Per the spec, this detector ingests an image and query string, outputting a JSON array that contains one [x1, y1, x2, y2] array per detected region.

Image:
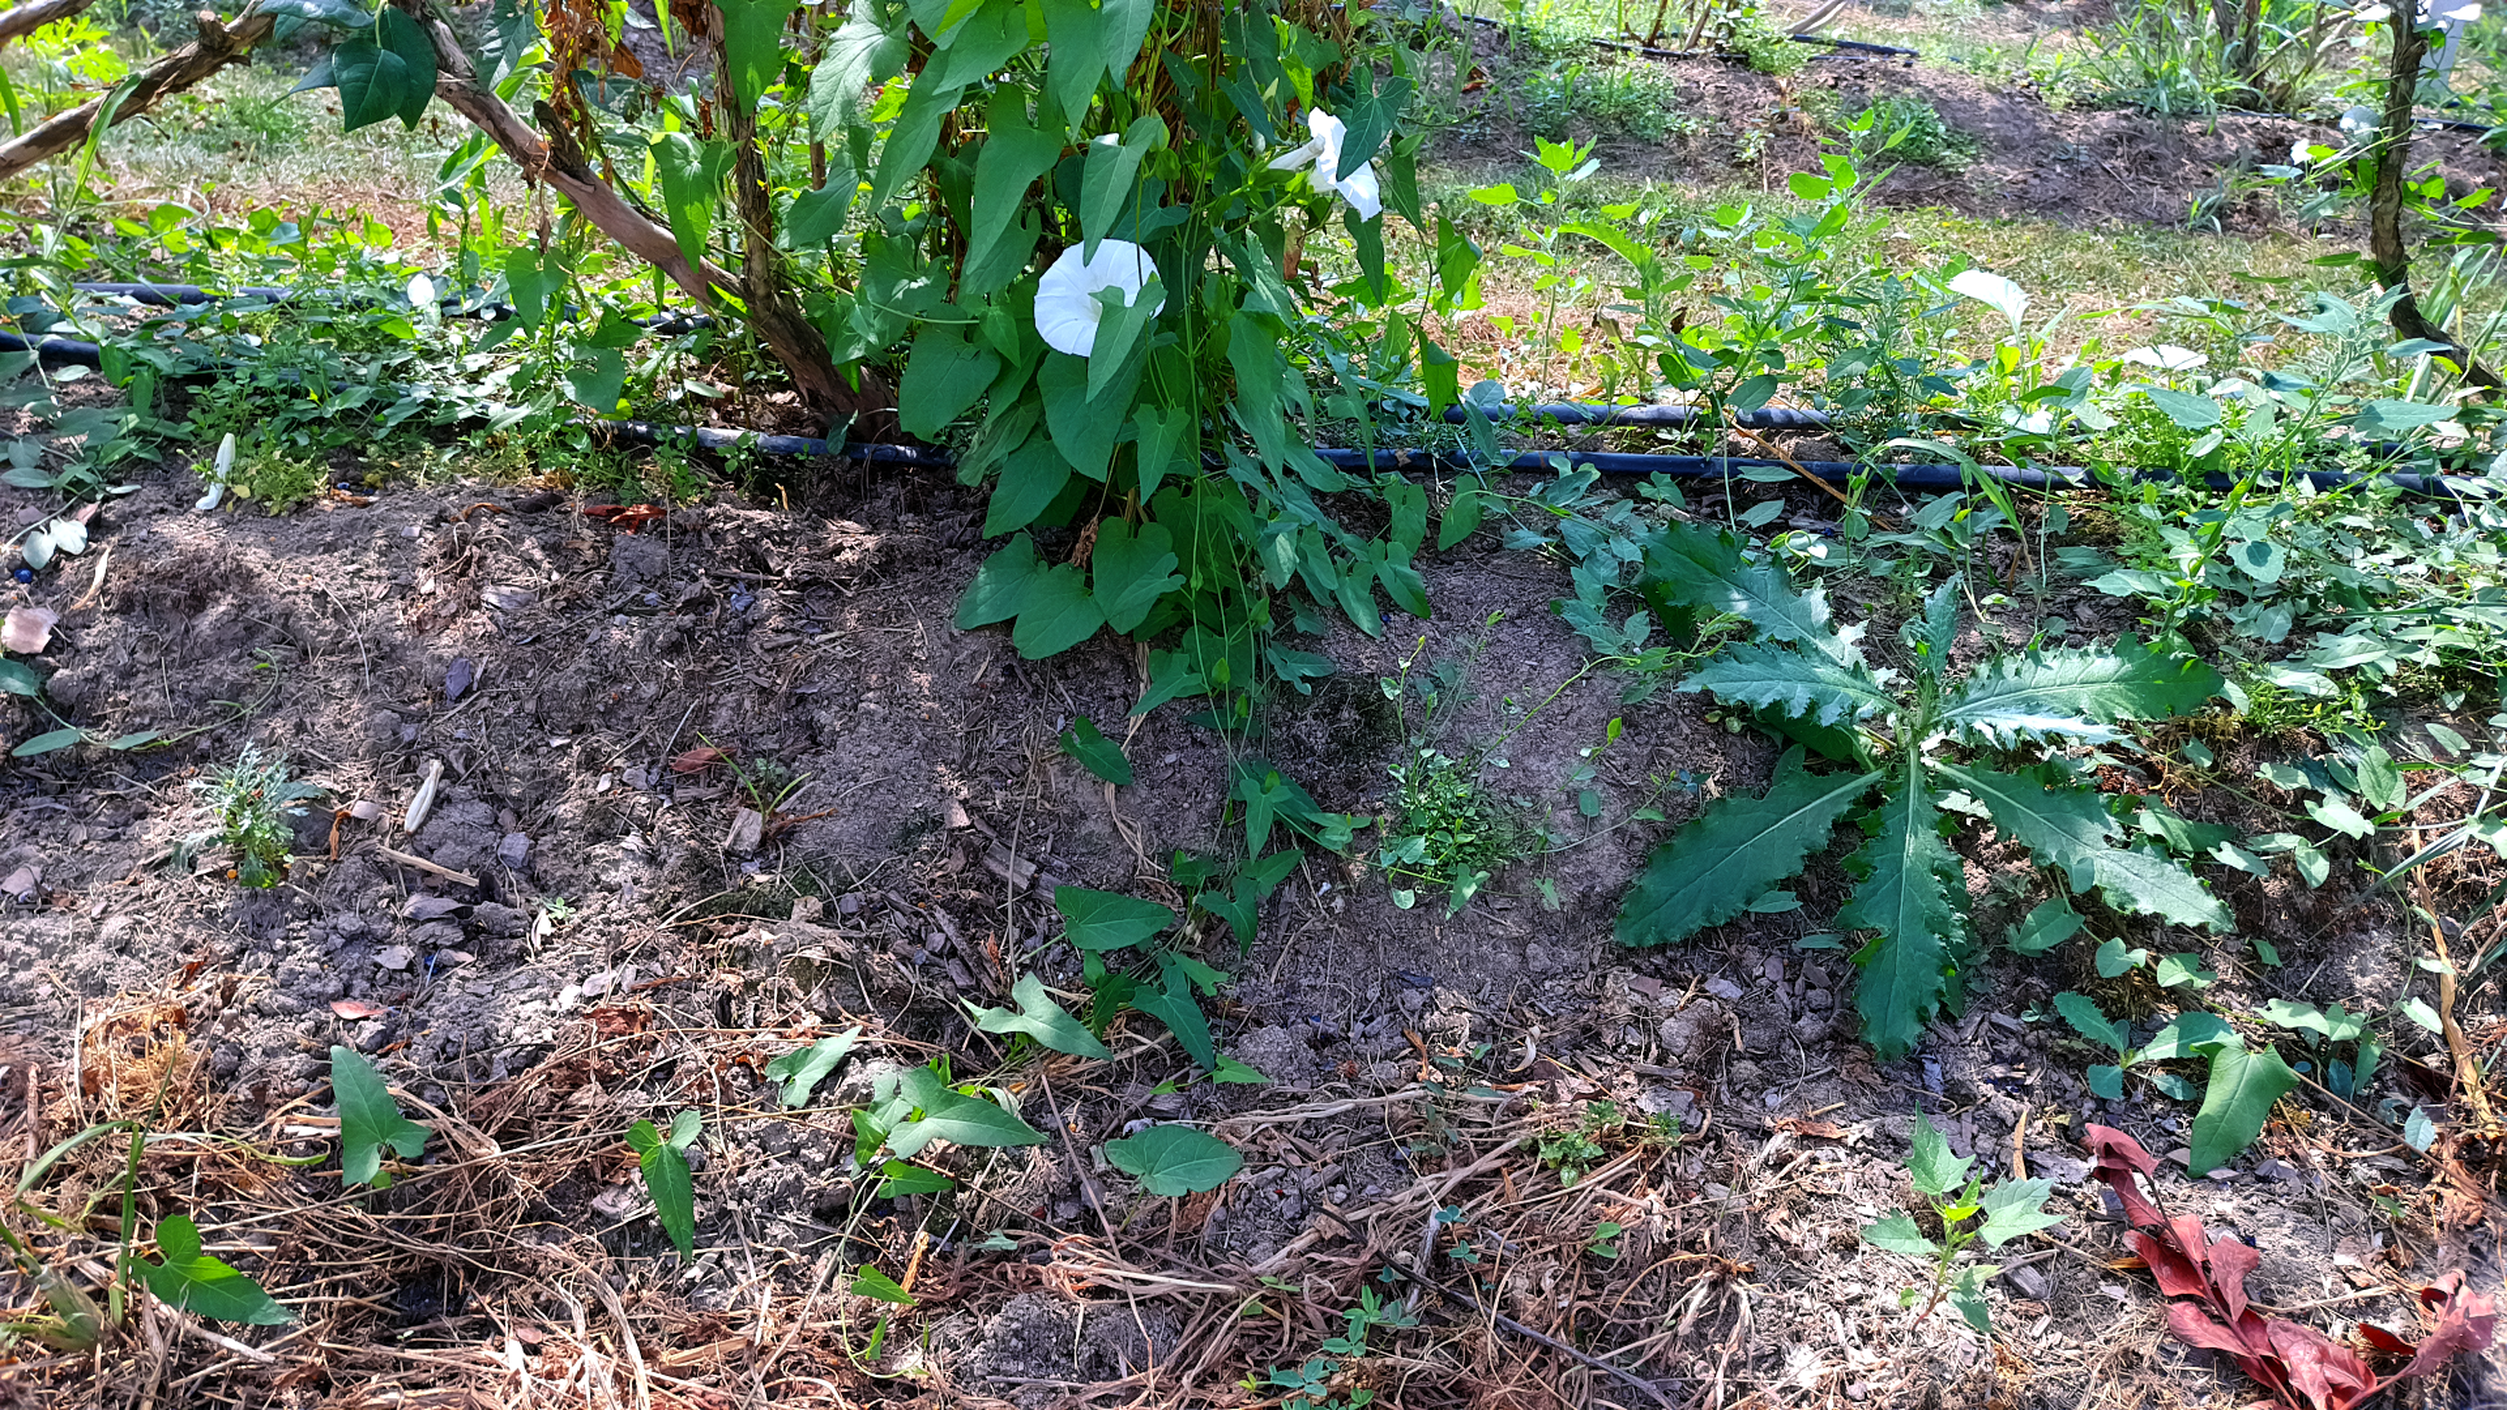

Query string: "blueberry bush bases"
[[2309, 211, 2507, 652], [2198, 51, 2335, 138], [586, 150, 1369, 658]]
